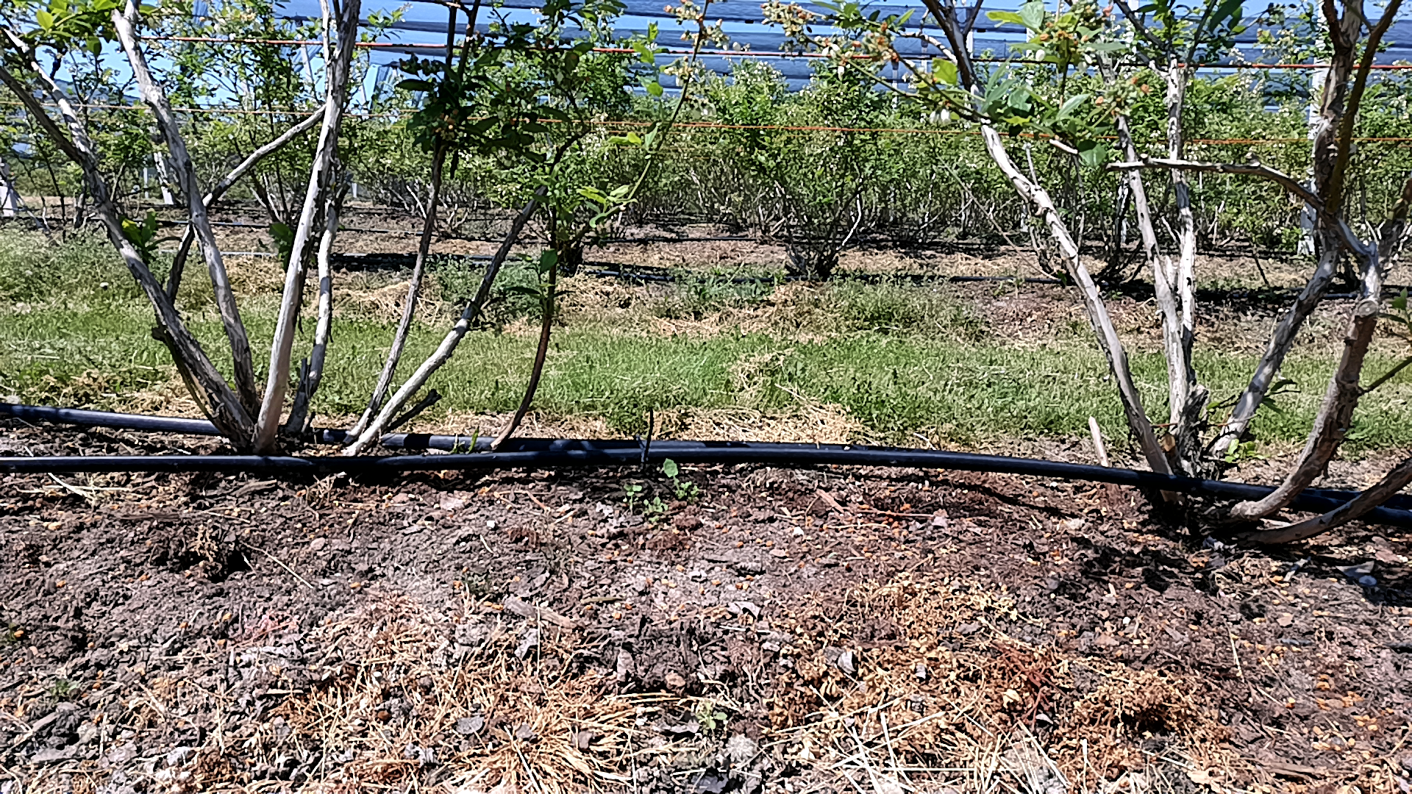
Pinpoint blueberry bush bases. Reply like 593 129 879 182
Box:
23 187 154 259
249 194 341 252
771 238 858 293
1006 224 1161 306
518 222 620 287
1067 309 1409 559
121 297 512 506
